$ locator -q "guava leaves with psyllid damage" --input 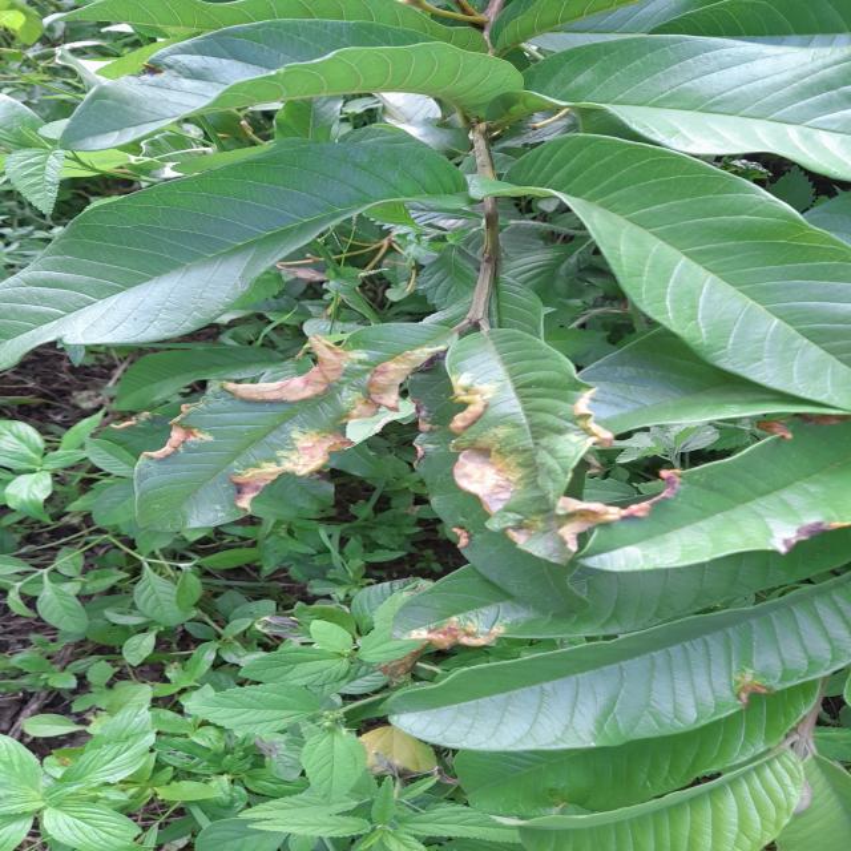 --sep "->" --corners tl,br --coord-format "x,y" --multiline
436,322 -> 636,572
100,295 -> 436,586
